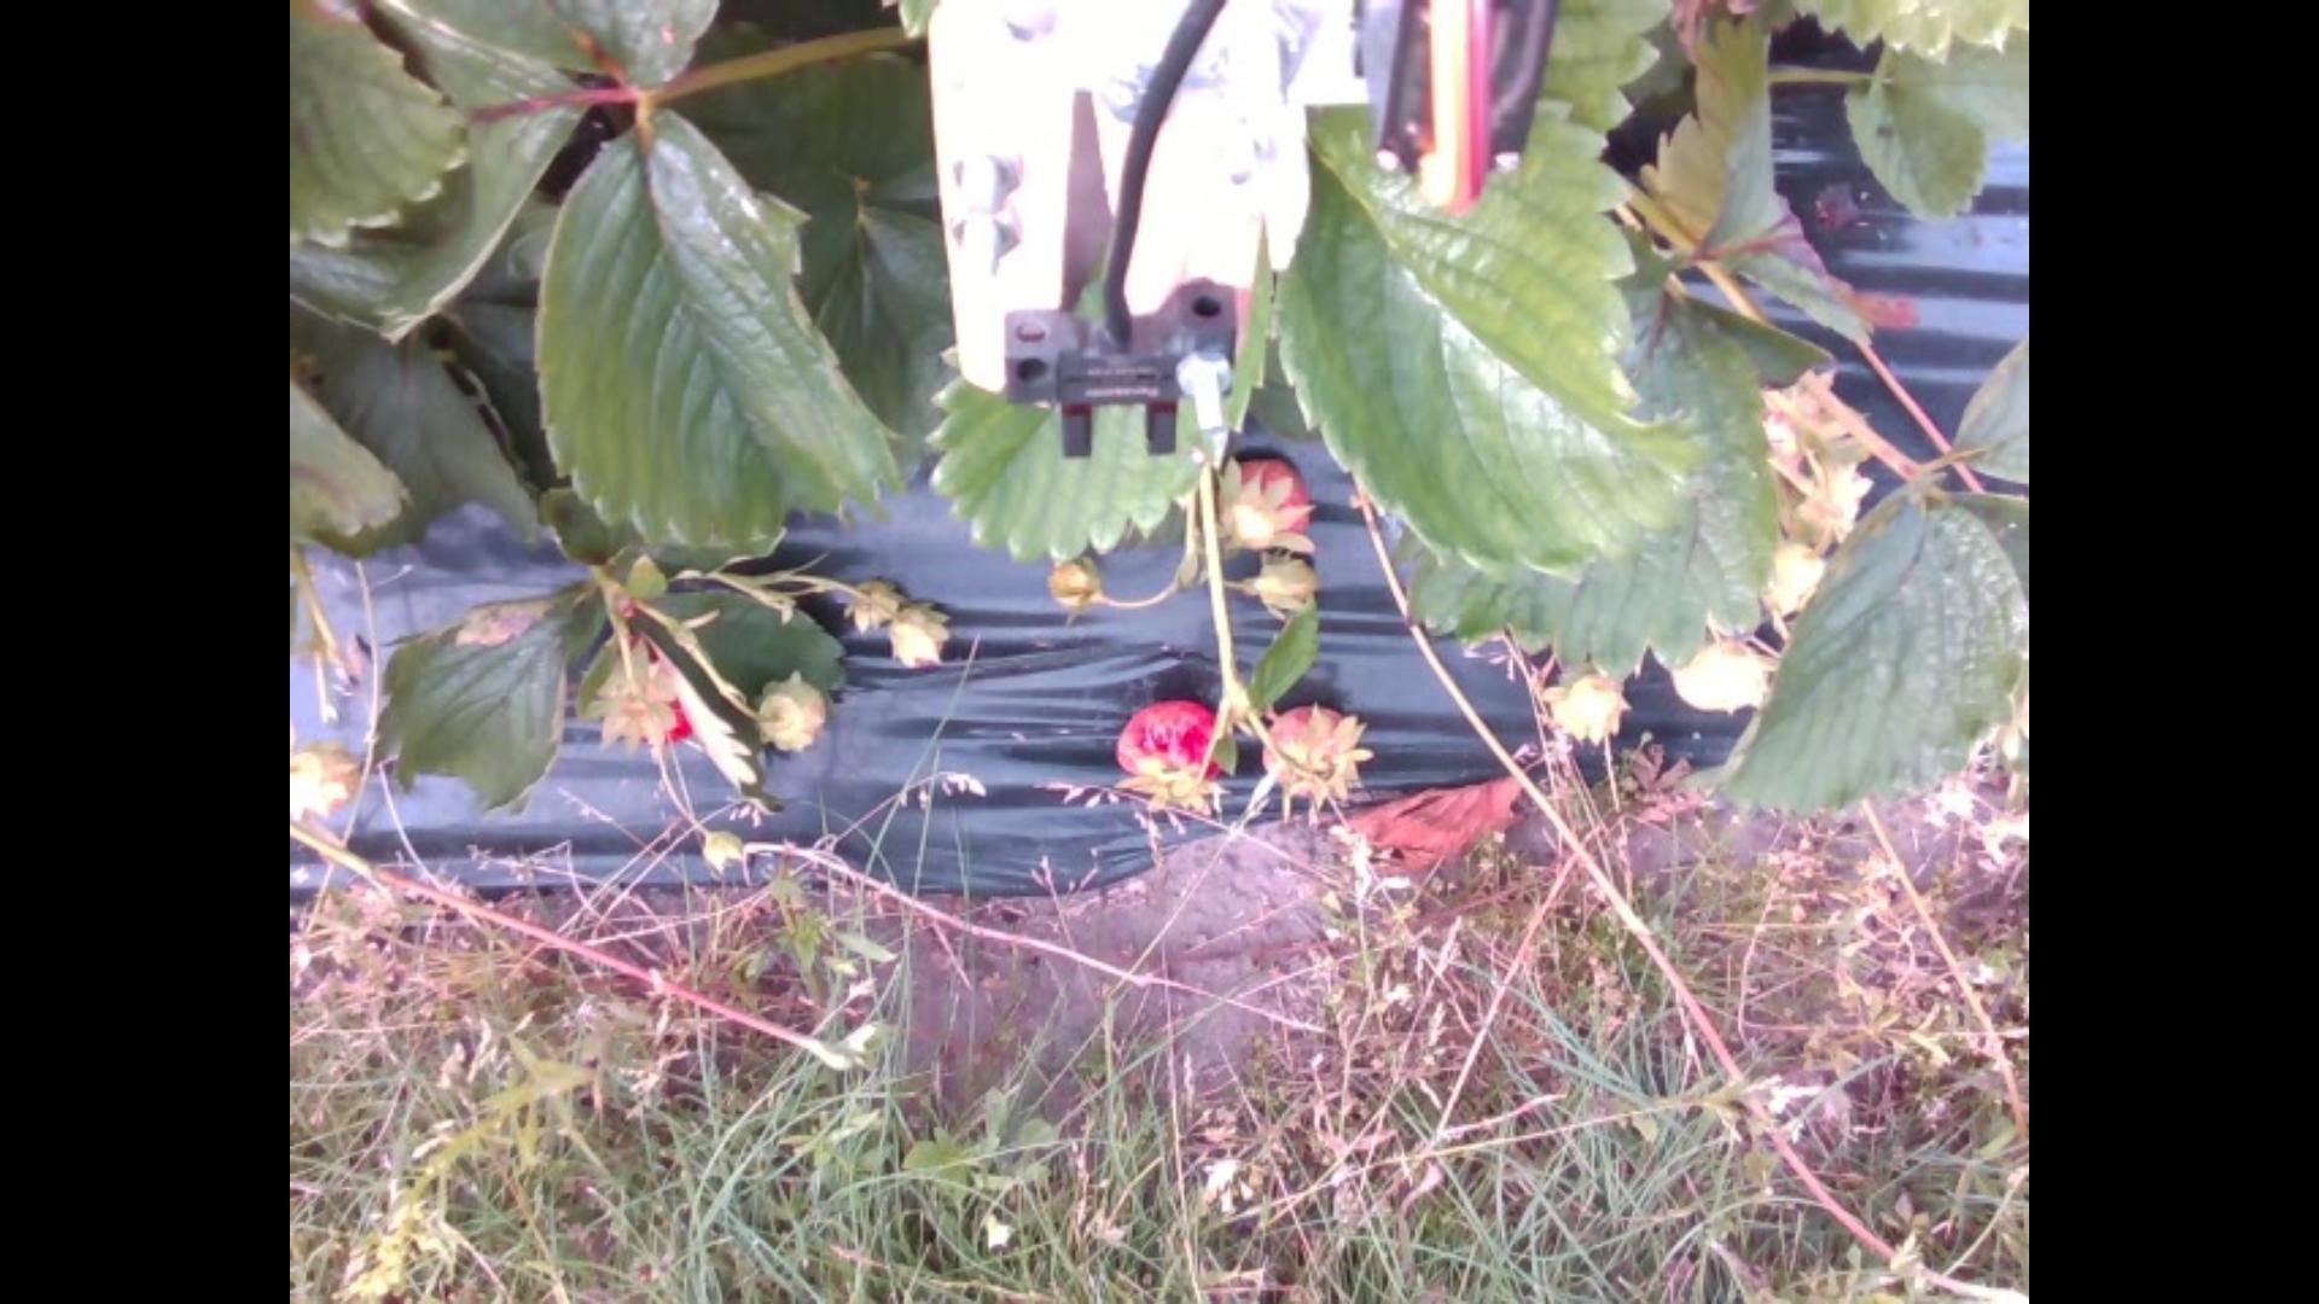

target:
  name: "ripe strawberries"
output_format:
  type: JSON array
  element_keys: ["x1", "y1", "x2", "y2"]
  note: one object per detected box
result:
[
  {"x1": 1114, "y1": 706, "x2": 1230, "y2": 816},
  {"x1": 615, "y1": 684, "x2": 714, "y2": 761},
  {"x1": 1216, "y1": 455, "x2": 1326, "y2": 563}
]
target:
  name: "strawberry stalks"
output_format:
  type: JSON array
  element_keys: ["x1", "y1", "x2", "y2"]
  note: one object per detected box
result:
[
  {"x1": 1085, "y1": 570, "x2": 1156, "y2": 622},
  {"x1": 679, "y1": 802, "x2": 743, "y2": 874},
  {"x1": 1279, "y1": 724, "x2": 1331, "y2": 793},
  {"x1": 722, "y1": 657, "x2": 766, "y2": 735},
  {"x1": 1234, "y1": 574, "x2": 1274, "y2": 606},
  {"x1": 1165, "y1": 706, "x2": 1239, "y2": 808},
  {"x1": 614, "y1": 684, "x2": 685, "y2": 737},
  {"x1": 864, "y1": 606, "x2": 941, "y2": 642},
  {"x1": 826, "y1": 569, "x2": 879, "y2": 610}
]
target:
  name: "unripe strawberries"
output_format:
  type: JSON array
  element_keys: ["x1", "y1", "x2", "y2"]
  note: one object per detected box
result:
[
  {"x1": 1260, "y1": 707, "x2": 1371, "y2": 810},
  {"x1": 1664, "y1": 629, "x2": 1773, "y2": 717},
  {"x1": 1248, "y1": 554, "x2": 1317, "y2": 610},
  {"x1": 1036, "y1": 553, "x2": 1112, "y2": 622},
  {"x1": 755, "y1": 677, "x2": 826, "y2": 757},
  {"x1": 1529, "y1": 660, "x2": 1646, "y2": 745}
]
